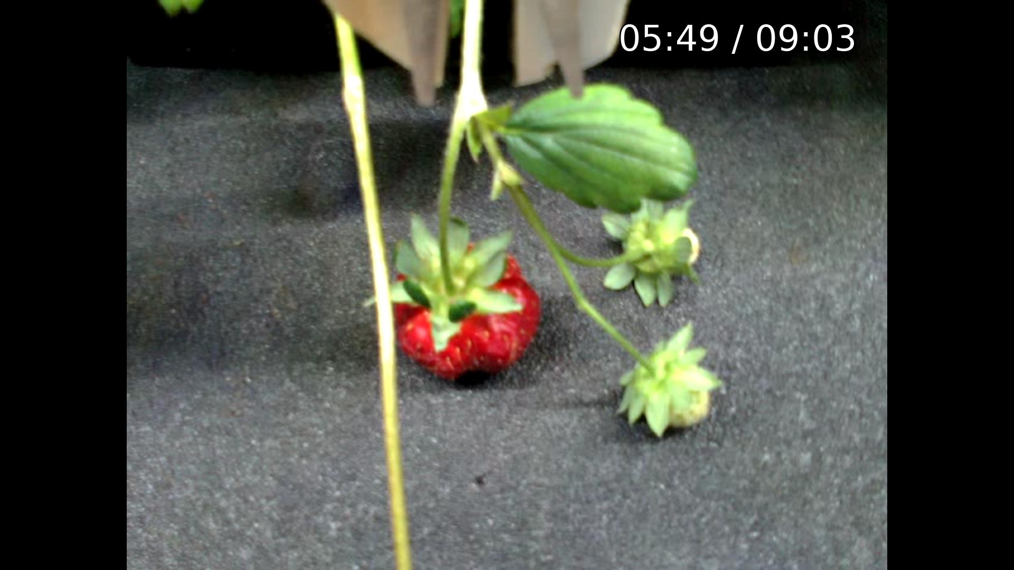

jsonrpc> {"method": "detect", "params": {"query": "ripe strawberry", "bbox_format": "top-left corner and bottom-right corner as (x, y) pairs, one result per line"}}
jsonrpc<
(388, 253), (548, 380)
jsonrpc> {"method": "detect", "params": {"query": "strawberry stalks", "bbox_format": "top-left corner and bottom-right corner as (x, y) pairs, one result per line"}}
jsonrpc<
(585, 293), (658, 381)
(416, 169), (462, 322)
(597, 230), (654, 271)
